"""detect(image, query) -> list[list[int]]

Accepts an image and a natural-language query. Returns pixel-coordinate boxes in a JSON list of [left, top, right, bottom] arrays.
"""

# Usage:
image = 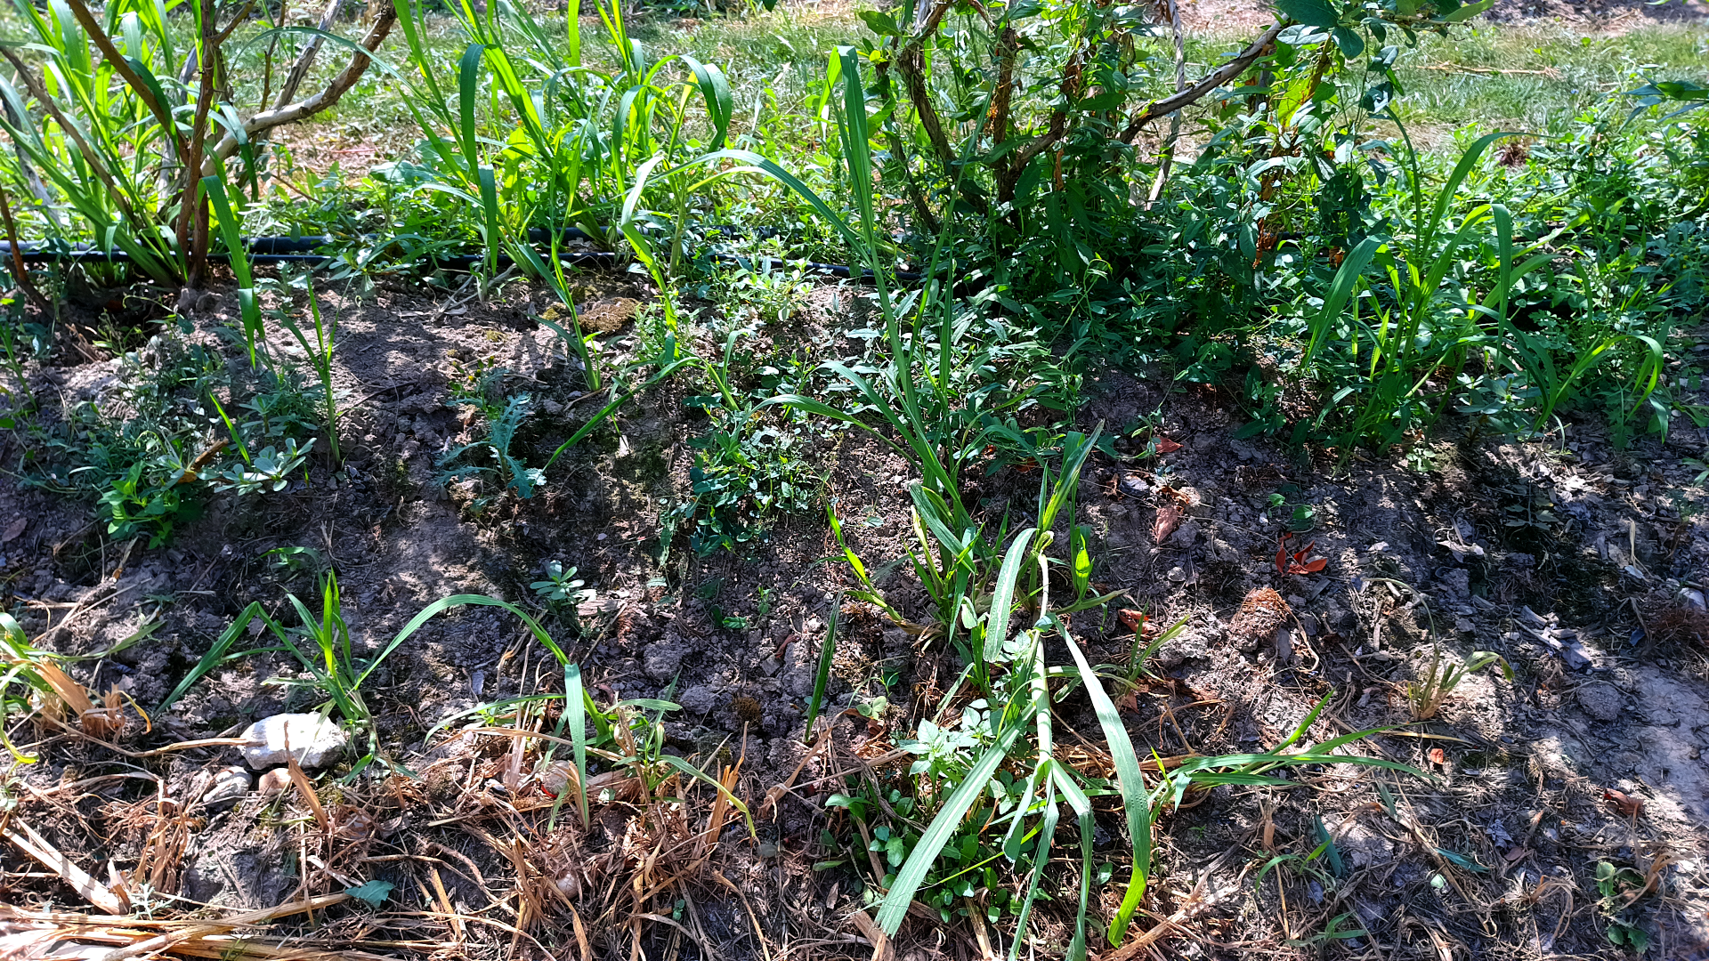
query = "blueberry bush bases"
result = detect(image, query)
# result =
[[872, 120, 1382, 411], [18, 138, 294, 370]]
